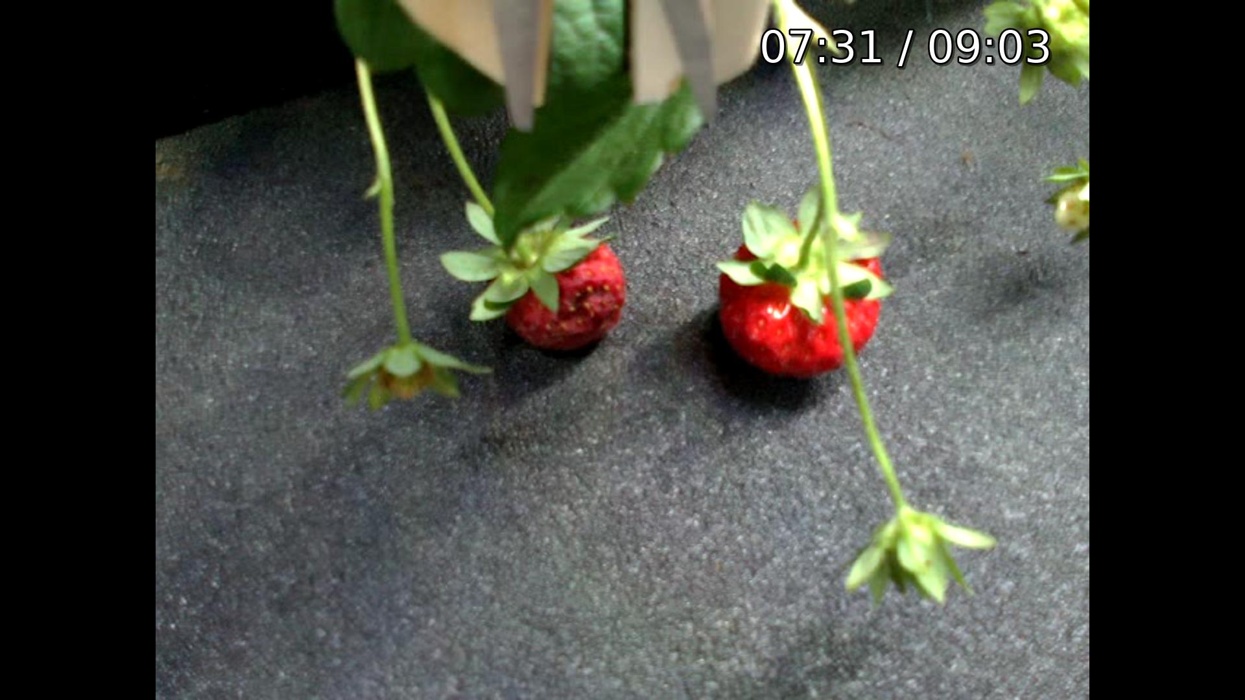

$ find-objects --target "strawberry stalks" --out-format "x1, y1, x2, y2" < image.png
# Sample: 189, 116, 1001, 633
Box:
756, 177, 861, 294
436, 115, 491, 267
865, 428, 940, 540
376, 252, 433, 358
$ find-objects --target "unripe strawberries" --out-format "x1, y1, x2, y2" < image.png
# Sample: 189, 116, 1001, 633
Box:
1049, 164, 1090, 241
371, 346, 432, 402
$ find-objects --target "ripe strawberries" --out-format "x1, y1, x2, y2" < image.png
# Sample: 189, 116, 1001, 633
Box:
714, 230, 907, 386
458, 230, 635, 371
